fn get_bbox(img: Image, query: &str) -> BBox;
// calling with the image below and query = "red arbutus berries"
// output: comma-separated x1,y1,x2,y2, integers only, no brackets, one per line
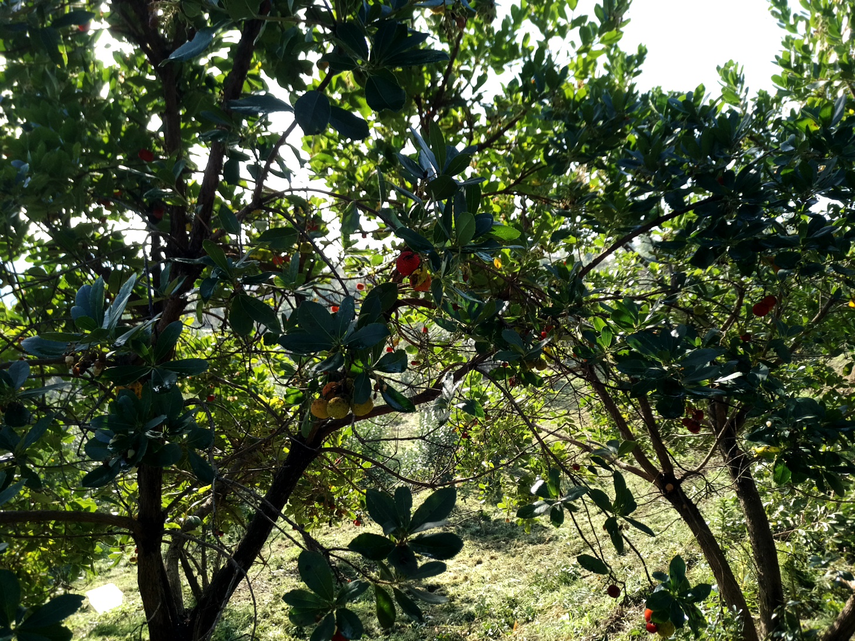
323,379,341,399
740,332,751,341
154,206,166,219
386,347,393,352
409,270,432,292
411,361,416,365
472,418,478,425
764,295,778,306
509,377,520,387
422,327,428,333
306,220,318,231
78,18,91,32
572,464,580,471
461,432,467,438
687,421,702,433
753,303,768,316
502,362,508,367
331,305,339,312
607,584,621,598
219,531,224,536
207,395,215,402
282,255,291,262
356,283,364,290
330,504,336,509
542,323,554,332
691,409,704,420
355,520,360,526
682,418,691,426
272,256,284,265
138,148,154,161
540,331,548,338
646,623,659,634
396,250,420,277
644,609,657,623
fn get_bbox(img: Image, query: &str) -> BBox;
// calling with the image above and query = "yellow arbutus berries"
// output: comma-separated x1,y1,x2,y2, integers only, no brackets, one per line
527,359,535,368
130,557,136,562
485,415,491,420
536,359,547,370
327,397,350,419
342,509,347,515
694,305,705,315
114,380,146,400
666,483,673,491
310,398,329,419
350,396,373,416
415,360,421,366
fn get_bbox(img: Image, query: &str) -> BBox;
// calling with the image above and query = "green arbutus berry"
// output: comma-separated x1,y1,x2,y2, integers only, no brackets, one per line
299,242,313,254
